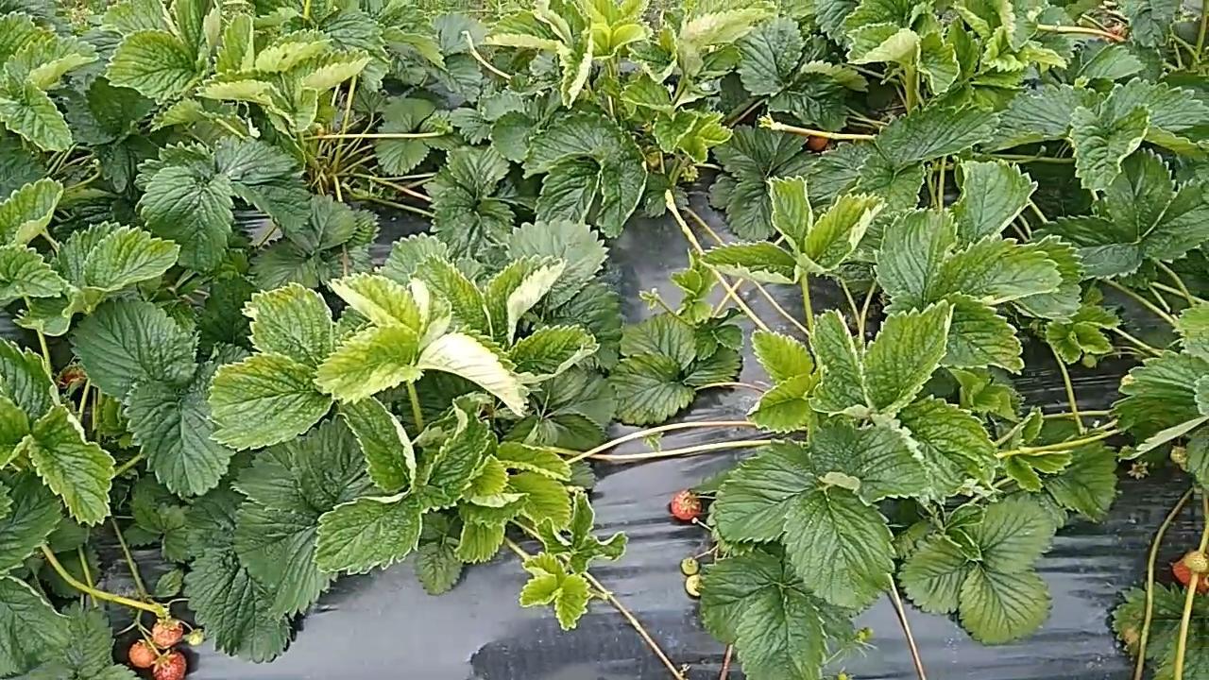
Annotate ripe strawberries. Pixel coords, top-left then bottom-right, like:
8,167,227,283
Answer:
152,653,192,680
151,619,184,649
669,485,705,523
1171,544,1207,589
803,127,831,156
